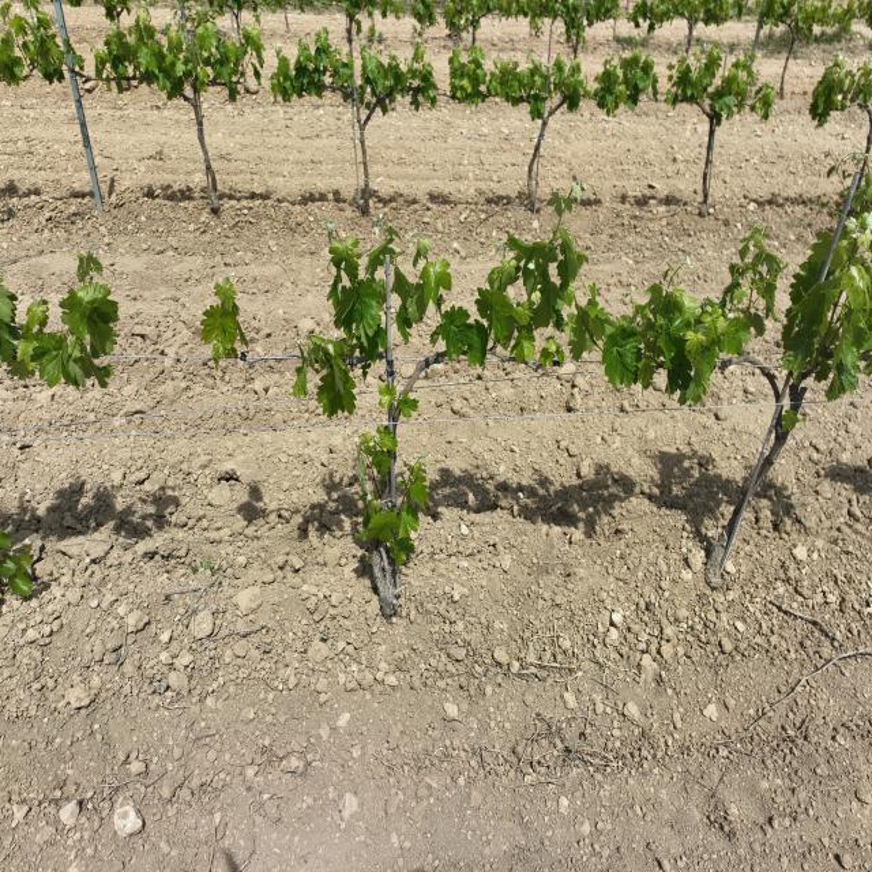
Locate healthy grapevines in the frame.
[575,199,872,609]
[198,214,574,644]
